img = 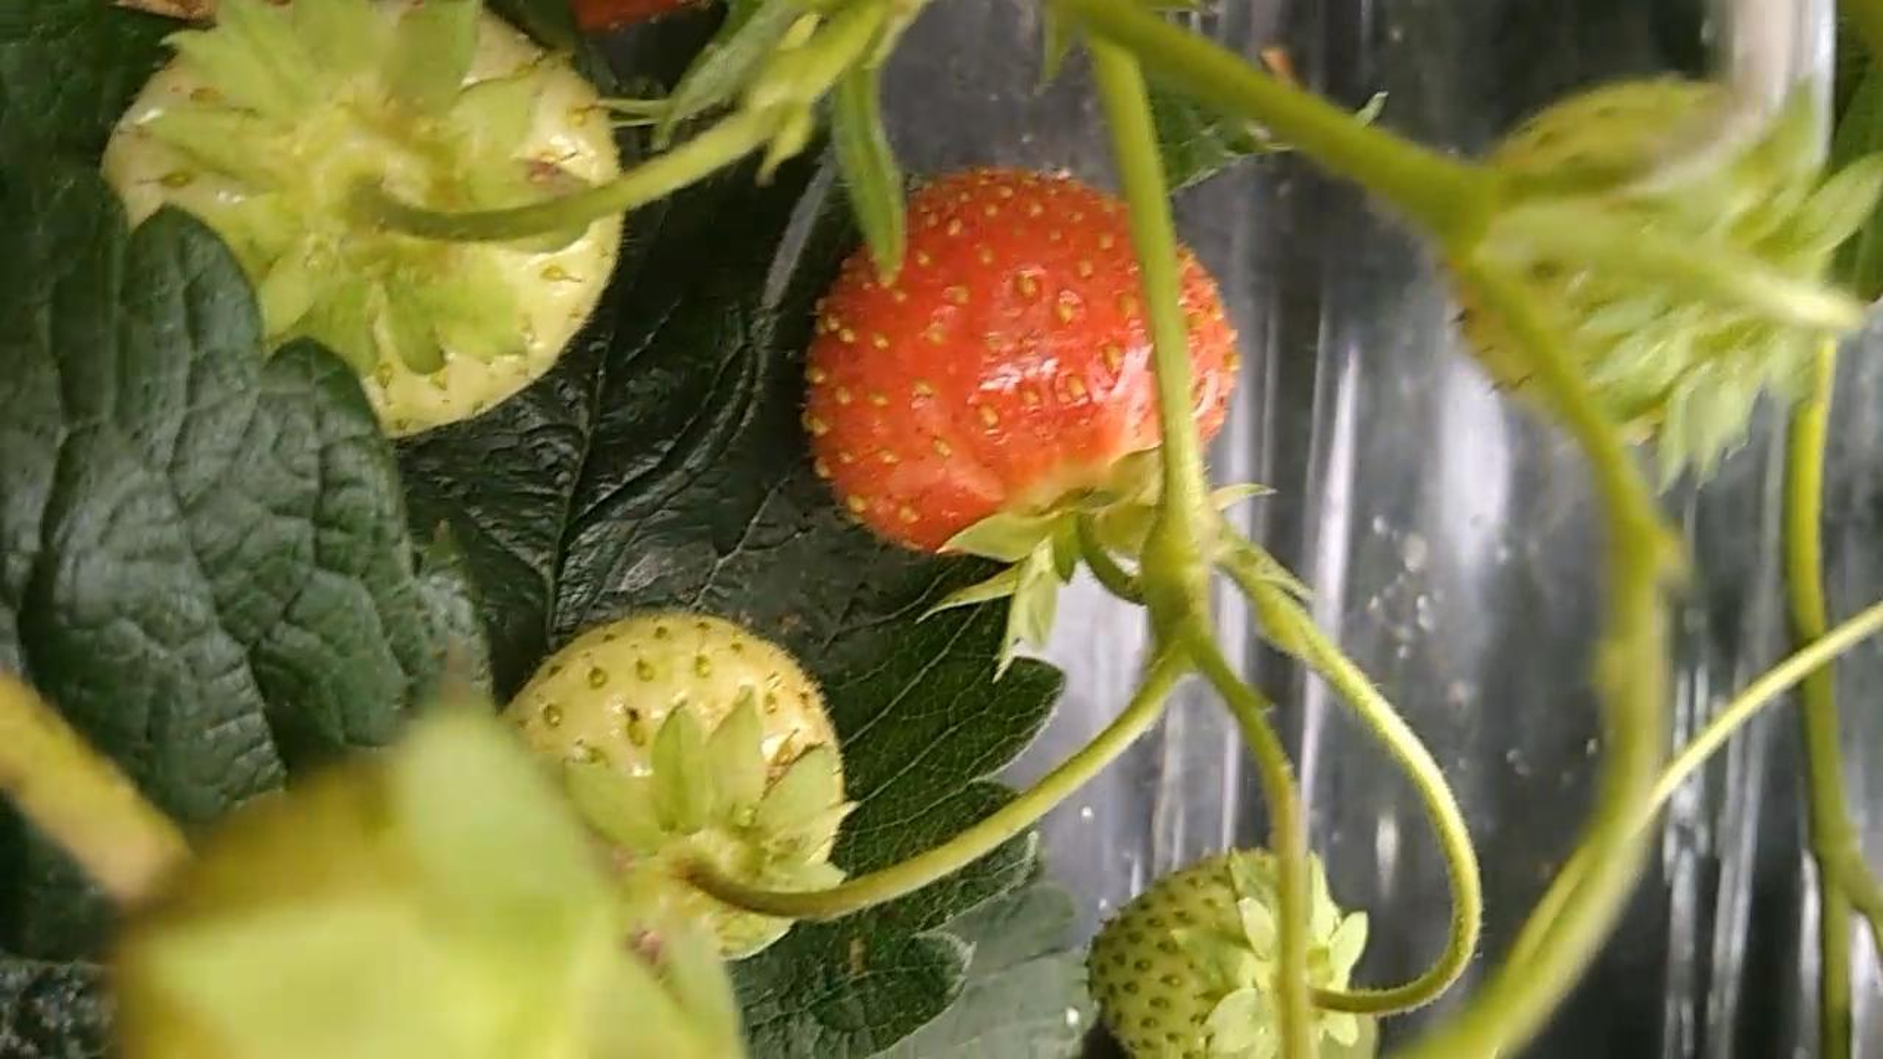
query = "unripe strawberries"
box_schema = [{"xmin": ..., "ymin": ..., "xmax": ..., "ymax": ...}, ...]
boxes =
[
  {"xmin": 1088, "ymin": 843, "xmax": 1366, "ymax": 1059},
  {"xmin": 485, "ymin": 601, "xmax": 850, "ymax": 971},
  {"xmin": 1450, "ymin": 68, "xmax": 1782, "ymax": 433},
  {"xmin": 93, "ymin": 3, "xmax": 643, "ymax": 441}
]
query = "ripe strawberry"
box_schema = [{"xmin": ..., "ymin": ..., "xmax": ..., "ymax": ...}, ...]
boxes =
[{"xmin": 807, "ymin": 161, "xmax": 1222, "ymax": 541}]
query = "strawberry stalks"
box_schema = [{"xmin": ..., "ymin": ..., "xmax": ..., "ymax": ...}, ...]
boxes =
[
  {"xmin": 967, "ymin": 454, "xmax": 1202, "ymax": 666},
  {"xmin": 673, "ymin": 799, "xmax": 935, "ymax": 954},
  {"xmin": 313, "ymin": 90, "xmax": 783, "ymax": 269},
  {"xmin": 1233, "ymin": 889, "xmax": 1509, "ymax": 1030},
  {"xmin": 1617, "ymin": 191, "xmax": 1883, "ymax": 341}
]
